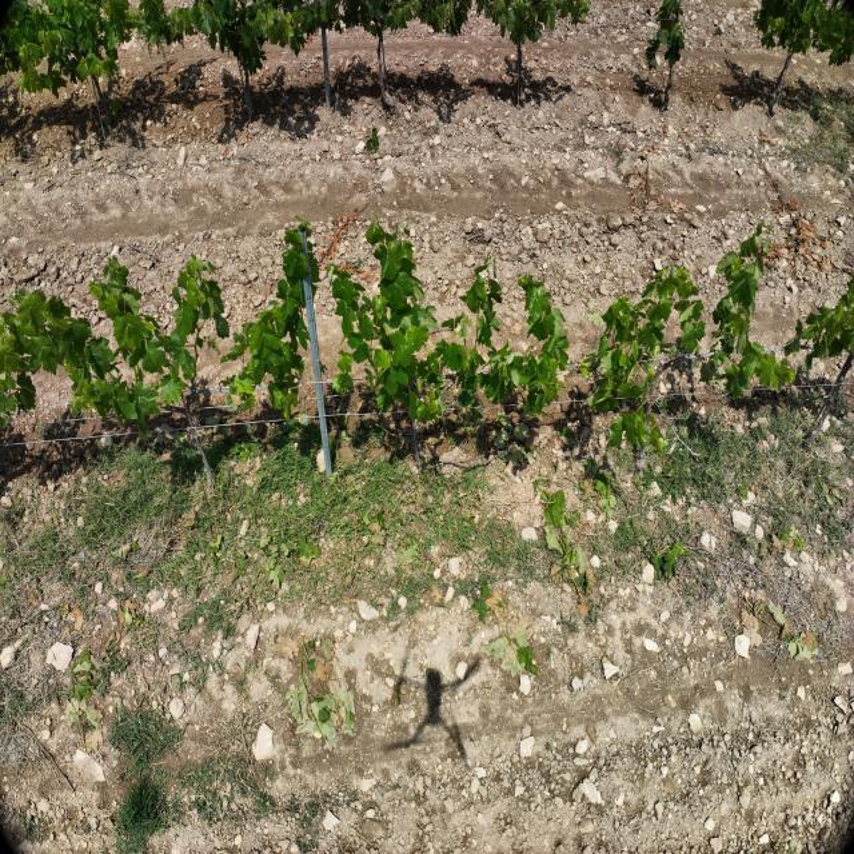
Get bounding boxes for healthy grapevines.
[302,218,580,487]
[7,223,327,514]
[583,218,854,454]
